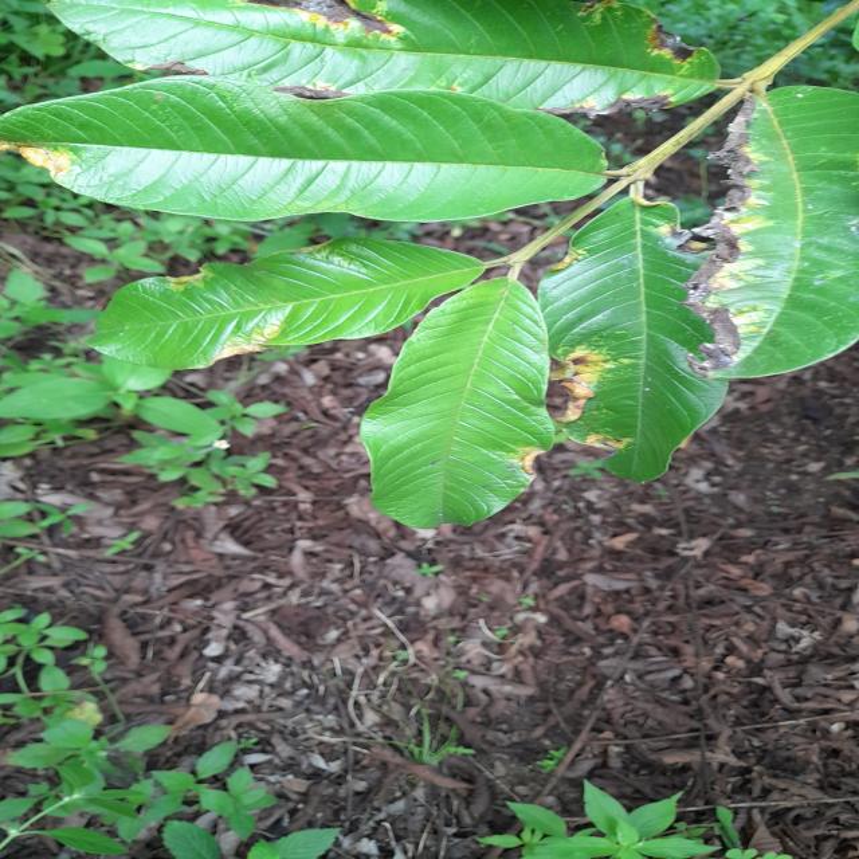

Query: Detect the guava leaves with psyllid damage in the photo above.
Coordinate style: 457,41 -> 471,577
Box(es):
0,72 -> 635,229
74,239 -> 516,372
357,271 -> 566,540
